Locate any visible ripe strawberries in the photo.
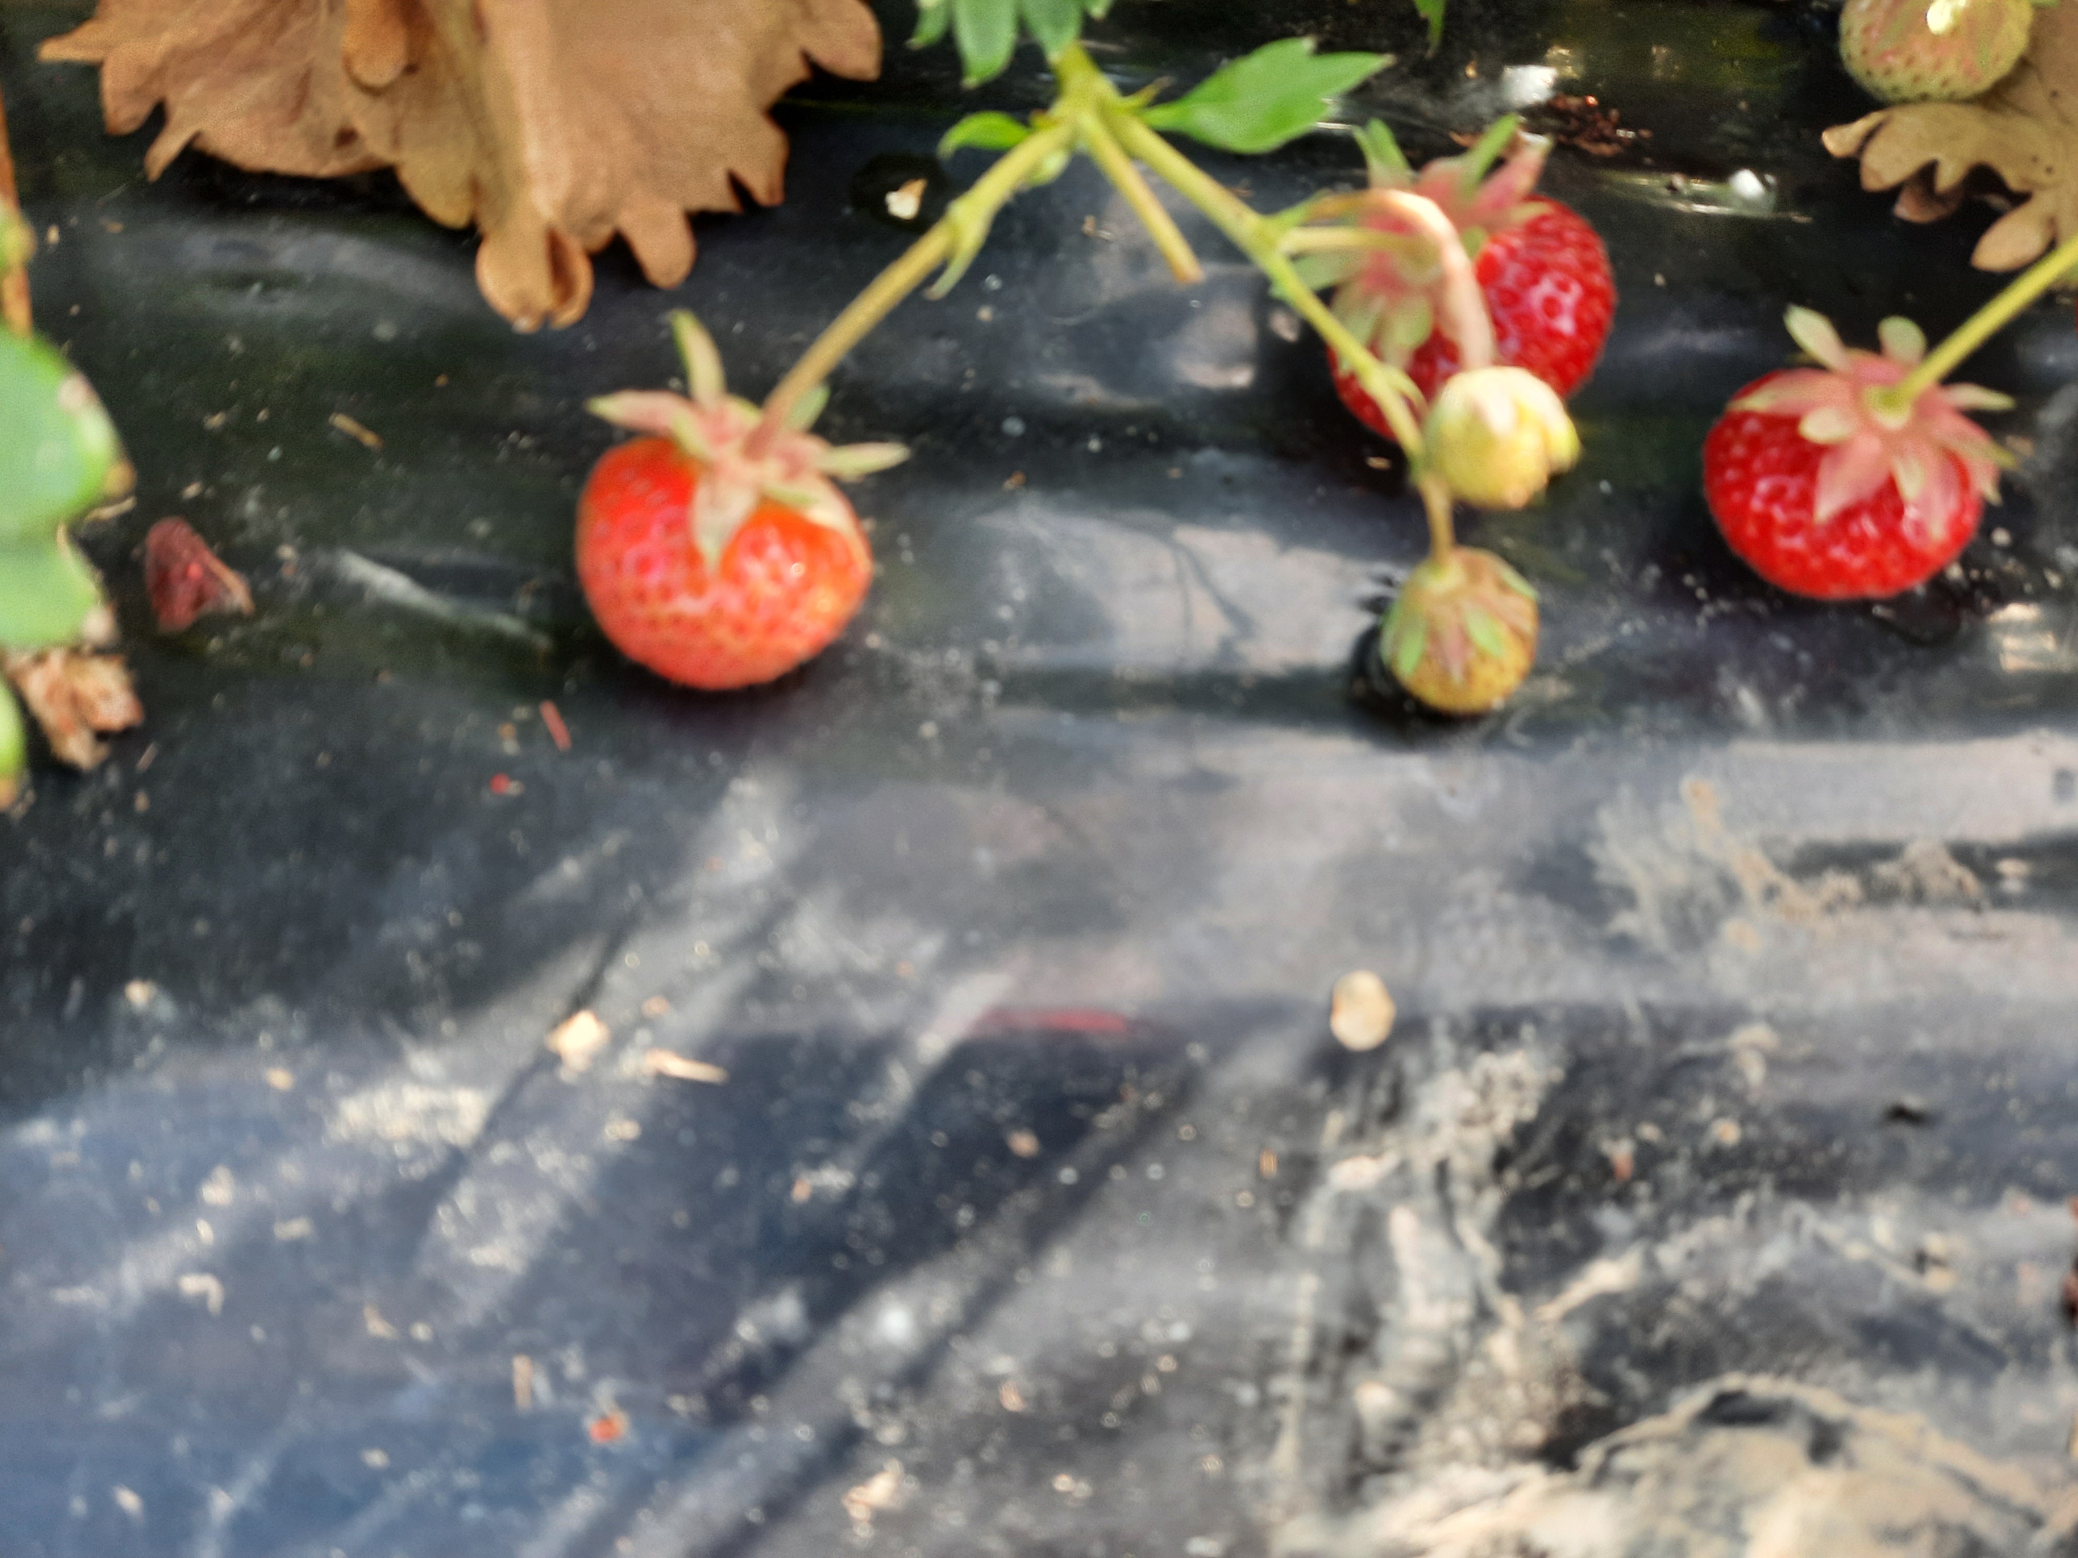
[1324,168,1629,413]
[595,410,830,674]
[1694,348,1998,616]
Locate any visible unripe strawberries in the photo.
[1416,366,1587,503]
[1395,545,1539,720]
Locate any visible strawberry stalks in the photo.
[677,235,928,509]
[1847,232,2078,442]
[1257,182,1487,276]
